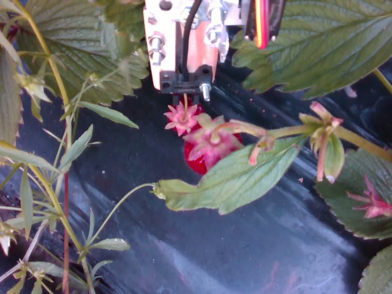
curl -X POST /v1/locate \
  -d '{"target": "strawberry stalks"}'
[206,119,246,147]
[179,91,193,125]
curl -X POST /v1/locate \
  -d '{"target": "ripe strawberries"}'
[167,100,203,132]
[185,119,242,171]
